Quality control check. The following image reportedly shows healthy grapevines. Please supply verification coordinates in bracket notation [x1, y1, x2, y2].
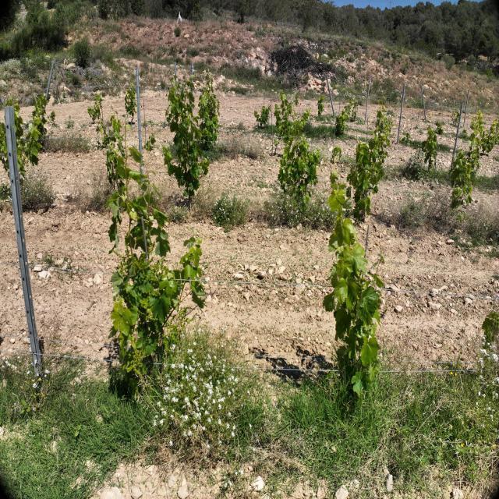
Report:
[94, 151, 207, 402]
[318, 172, 396, 416]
